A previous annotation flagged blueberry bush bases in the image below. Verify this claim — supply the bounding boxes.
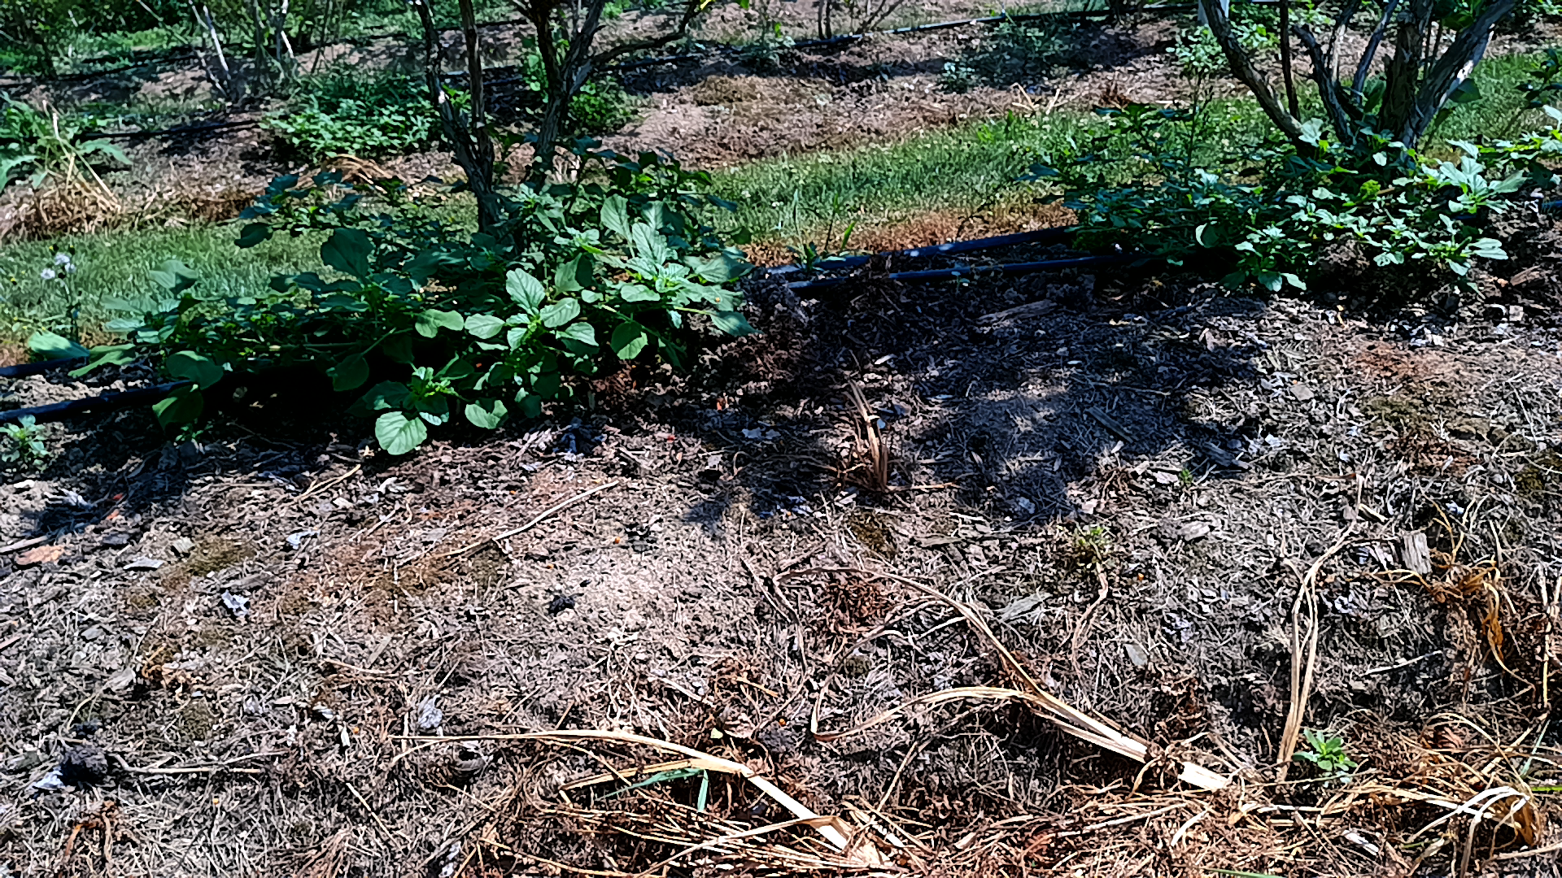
[1197,7,1514,202]
[149,3,341,131]
[405,56,638,321]
[807,2,913,68]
